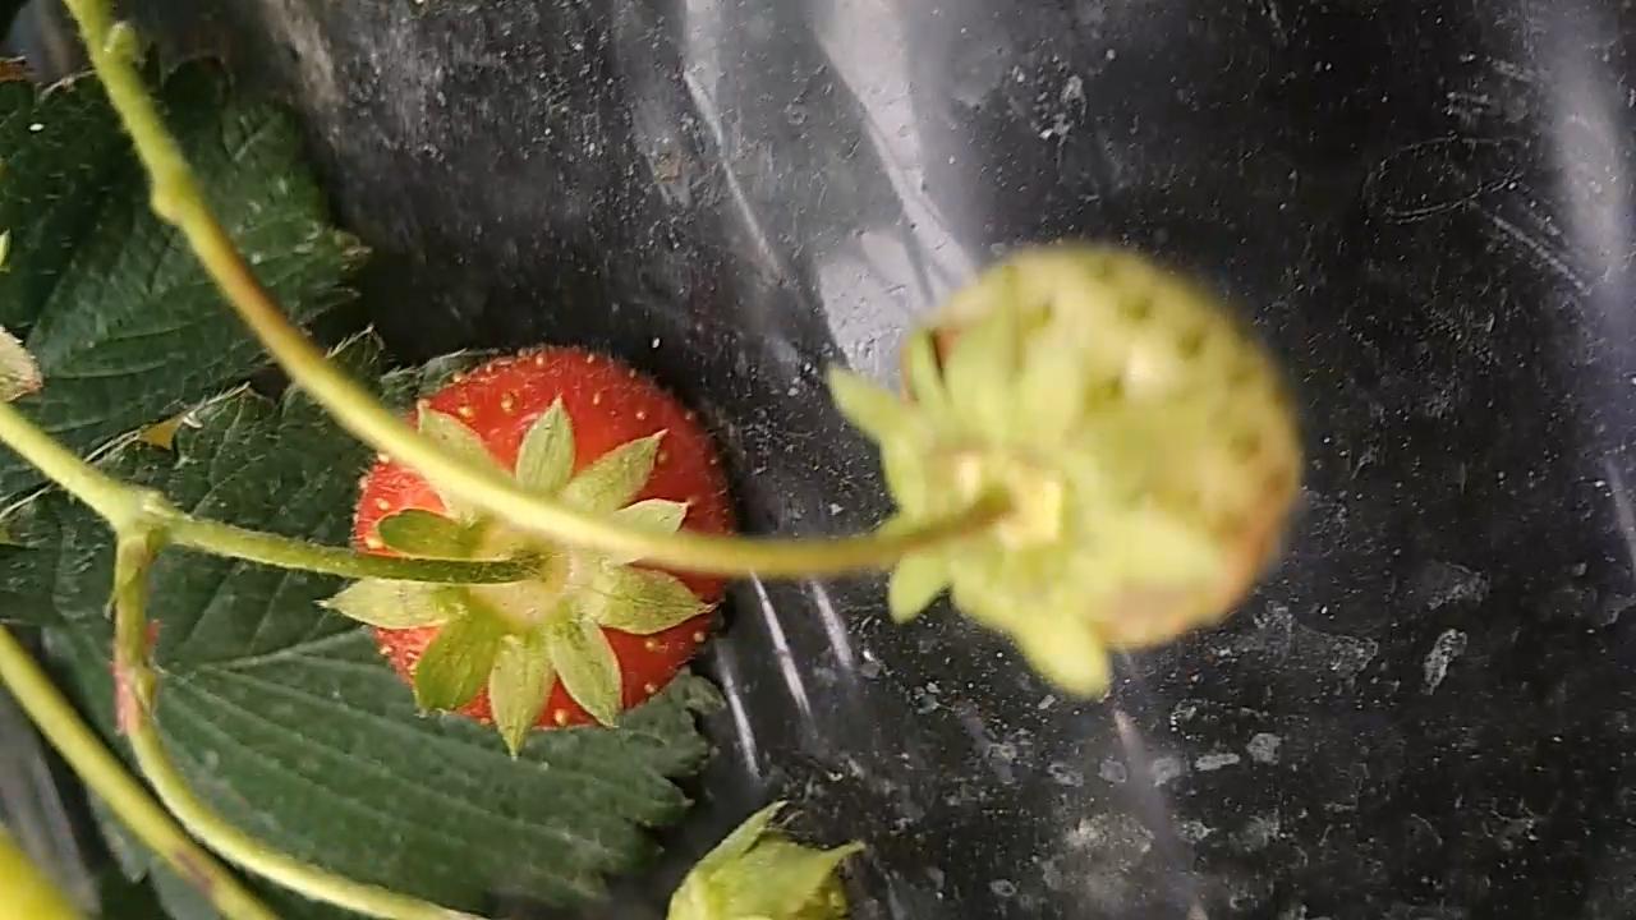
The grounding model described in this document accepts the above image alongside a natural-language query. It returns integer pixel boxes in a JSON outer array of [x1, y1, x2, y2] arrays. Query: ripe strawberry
[[333, 346, 742, 735]]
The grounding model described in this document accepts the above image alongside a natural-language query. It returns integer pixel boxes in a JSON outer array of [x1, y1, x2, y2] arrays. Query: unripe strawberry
[[860, 239, 1313, 663]]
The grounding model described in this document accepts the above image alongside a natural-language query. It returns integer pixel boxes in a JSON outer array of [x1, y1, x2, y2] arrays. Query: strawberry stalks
[[184, 516, 594, 598], [752, 460, 1081, 581]]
